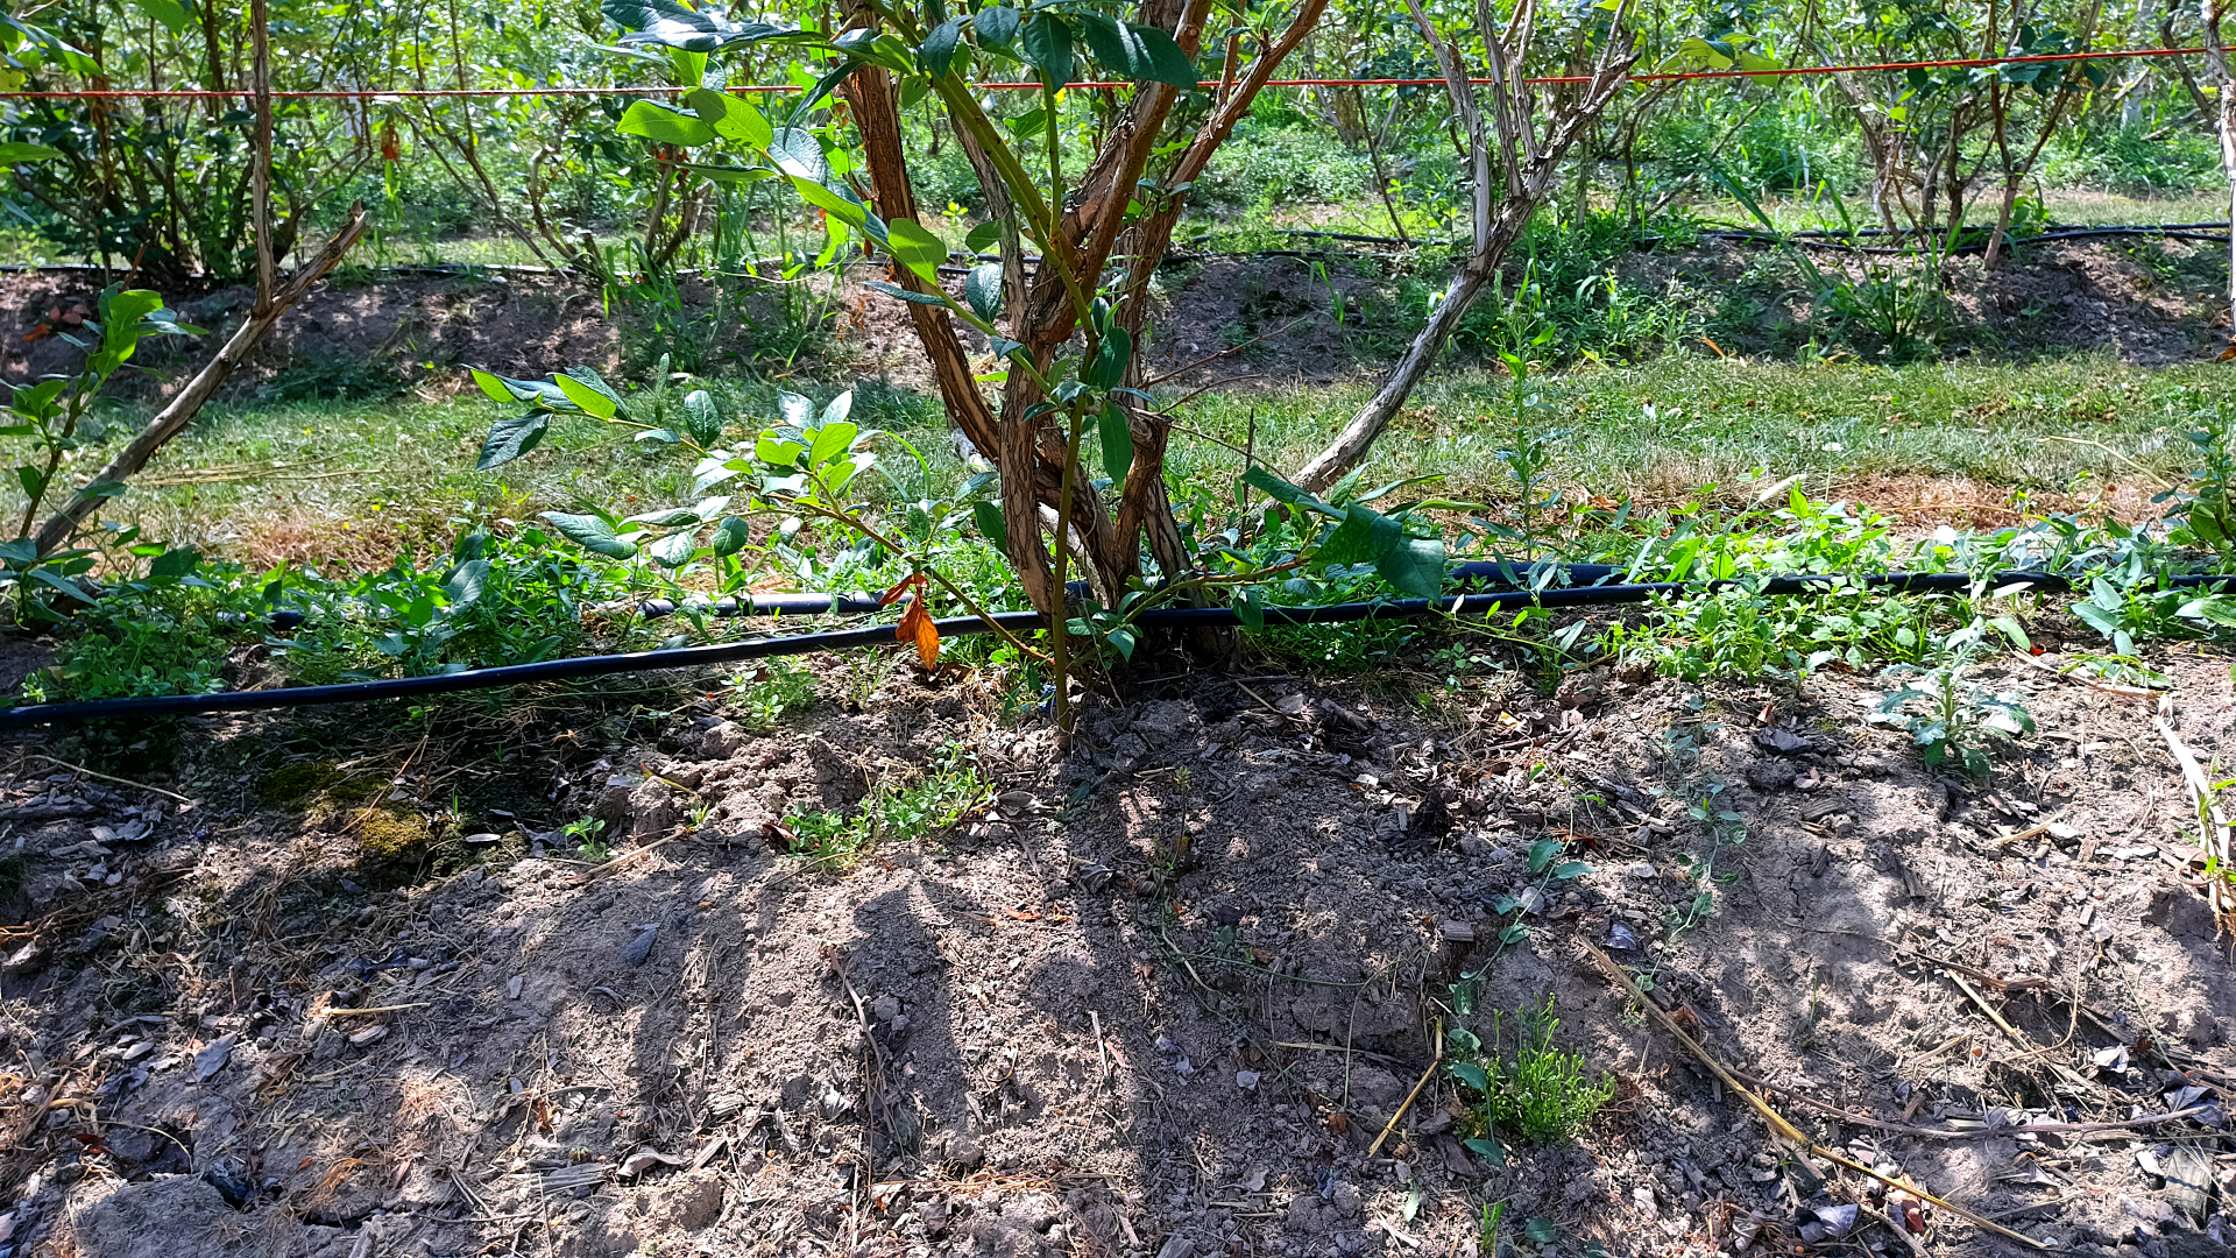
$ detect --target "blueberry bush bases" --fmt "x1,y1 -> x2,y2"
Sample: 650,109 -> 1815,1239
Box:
495,178 -> 729,348
3,396 -> 190,789
1841,147 -> 2054,297
40,183 -> 382,370
1554,168 -> 1680,275
877,339 -> 1423,751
